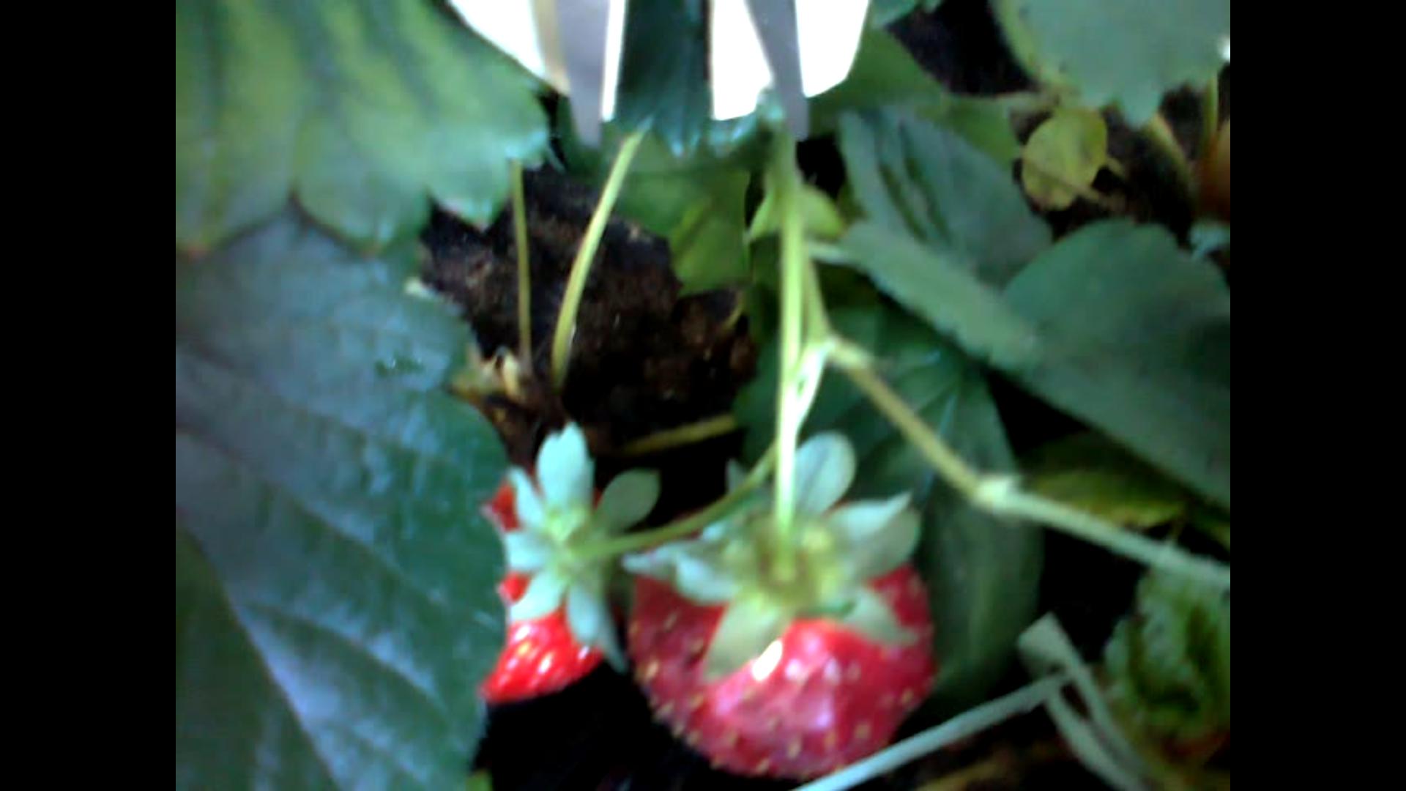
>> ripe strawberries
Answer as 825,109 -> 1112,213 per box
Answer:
629,473 -> 967,783
455,390 -> 640,701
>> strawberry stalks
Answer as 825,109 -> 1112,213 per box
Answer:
751,250 -> 826,661
557,457 -> 775,614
